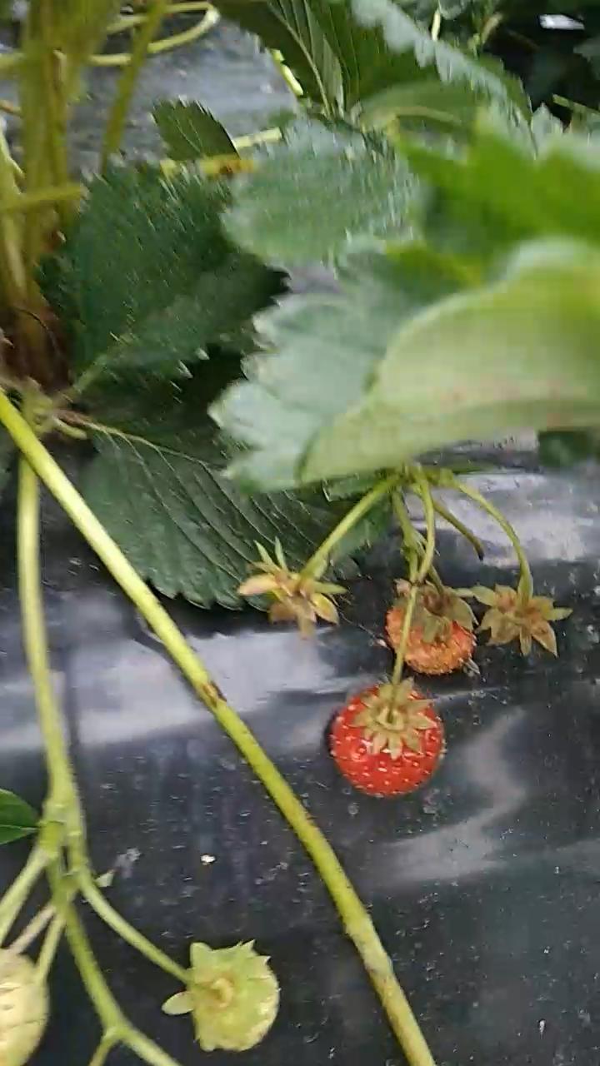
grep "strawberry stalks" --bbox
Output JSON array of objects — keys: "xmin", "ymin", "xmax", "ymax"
[
  {"xmin": 292, "ymin": 489, "xmax": 365, "ymax": 573},
  {"xmin": 482, "ymin": 510, "xmax": 539, "ymax": 623},
  {"xmin": 110, "ymin": 904, "xmax": 214, "ymax": 1000},
  {"xmin": 379, "ymin": 588, "xmax": 425, "ymax": 726}
]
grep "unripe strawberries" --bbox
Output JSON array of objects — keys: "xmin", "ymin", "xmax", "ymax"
[
  {"xmin": 380, "ymin": 576, "xmax": 480, "ymax": 683},
  {"xmin": 180, "ymin": 936, "xmax": 289, "ymax": 1060},
  {"xmin": 0, "ymin": 949, "xmax": 52, "ymax": 1066}
]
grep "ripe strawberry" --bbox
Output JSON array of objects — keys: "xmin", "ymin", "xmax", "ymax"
[{"xmin": 327, "ymin": 692, "xmax": 447, "ymax": 808}]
